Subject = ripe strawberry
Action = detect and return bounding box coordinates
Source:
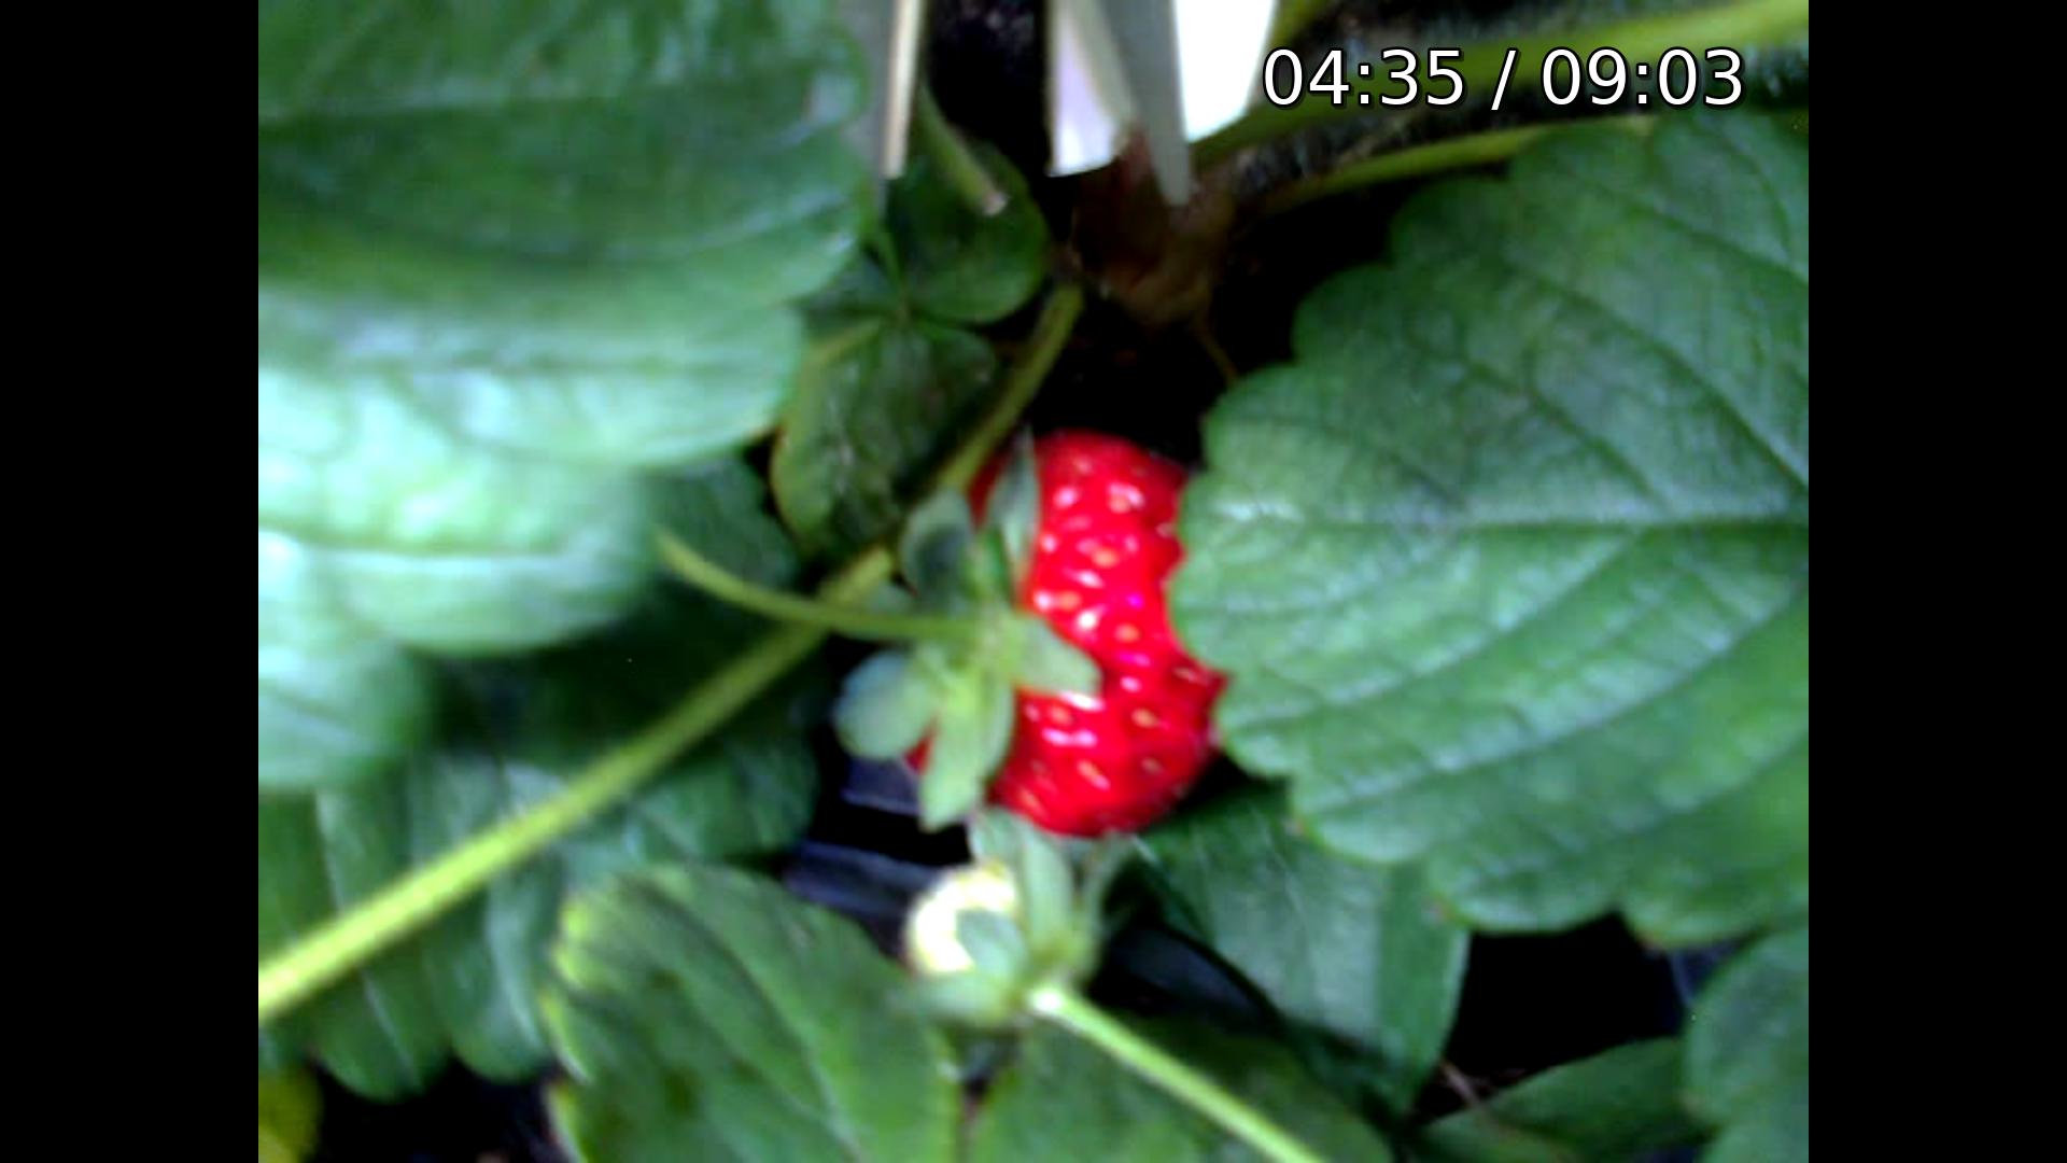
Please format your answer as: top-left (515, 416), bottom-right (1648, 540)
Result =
top-left (896, 425), bottom-right (1300, 856)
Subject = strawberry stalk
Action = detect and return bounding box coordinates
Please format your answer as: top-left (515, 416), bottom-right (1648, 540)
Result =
top-left (665, 562), bottom-right (1005, 669)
